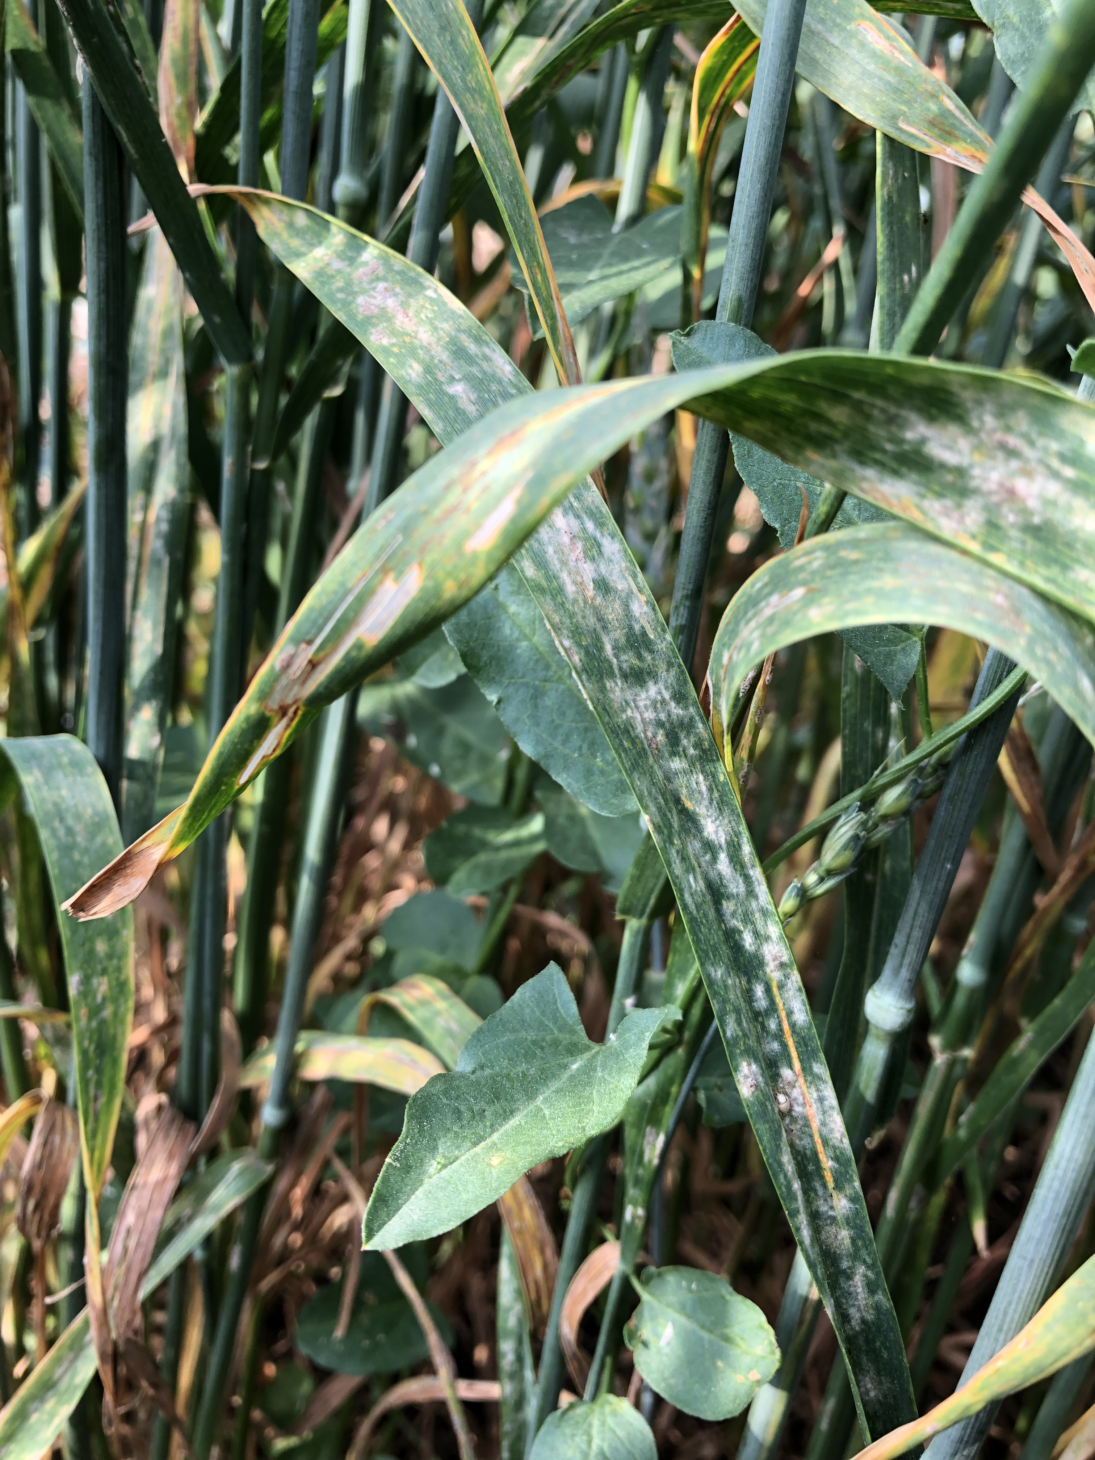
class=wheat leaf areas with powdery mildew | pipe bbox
[708,520,1086,767]
[58,936,169,1079]
[257,174,533,439]
[511,498,915,1415]
[704,329,1095,641]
